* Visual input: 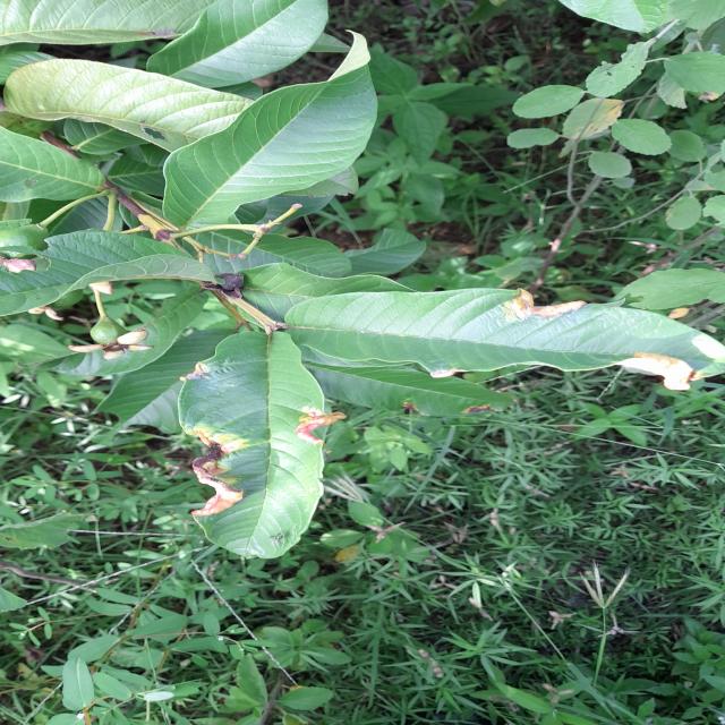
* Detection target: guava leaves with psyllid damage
[169,317,333,566]
[247,280,719,408]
